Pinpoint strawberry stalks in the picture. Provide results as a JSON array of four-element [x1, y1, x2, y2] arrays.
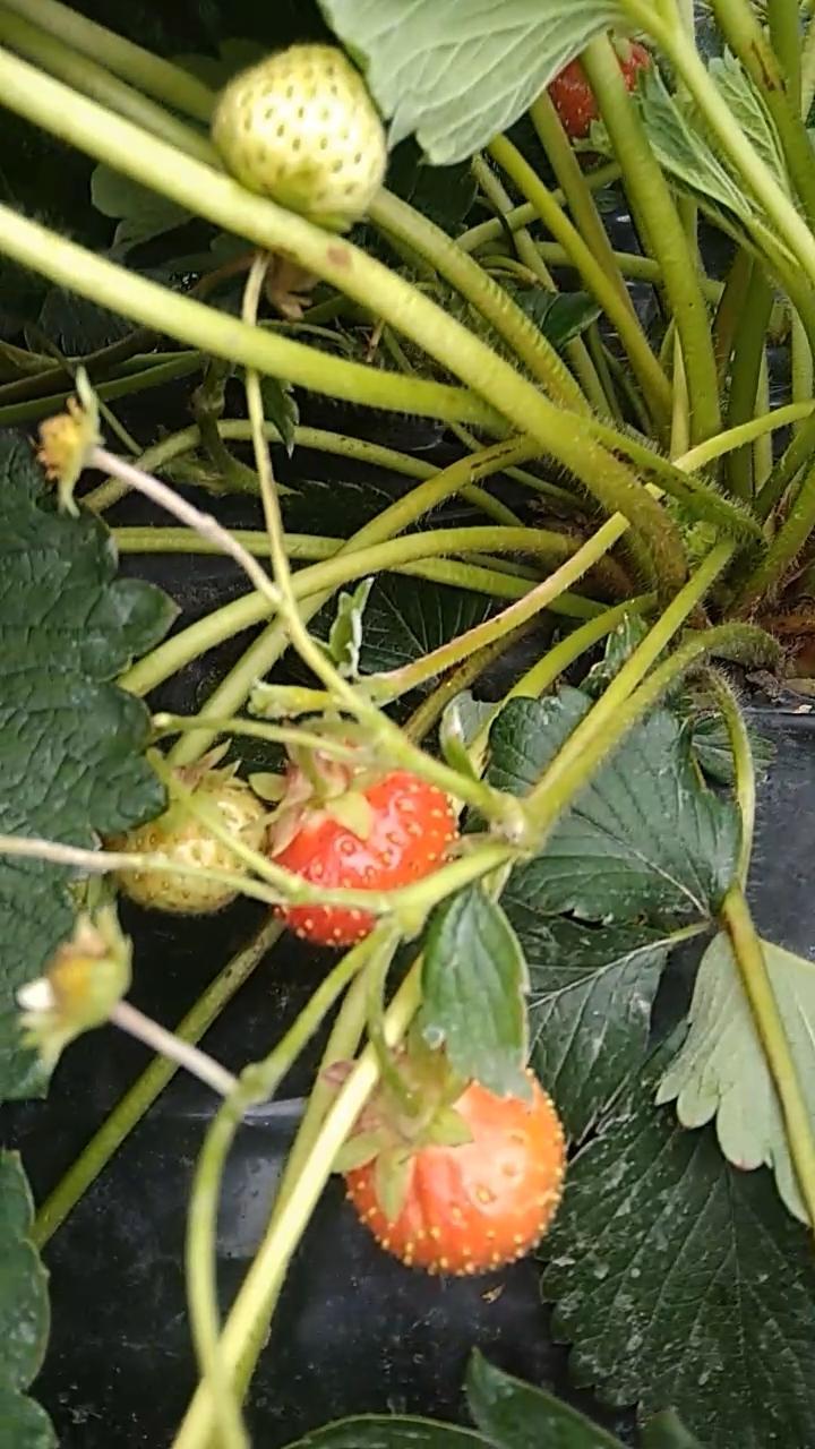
[[278, 715, 327, 817], [352, 988, 432, 1129], [241, 192, 301, 371]]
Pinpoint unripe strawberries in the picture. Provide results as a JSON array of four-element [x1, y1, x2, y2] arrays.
[[109, 747, 254, 929], [202, 33, 398, 223]]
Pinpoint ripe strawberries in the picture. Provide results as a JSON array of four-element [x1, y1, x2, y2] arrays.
[[518, 16, 679, 153], [269, 764, 461, 945], [332, 1060, 584, 1289]]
